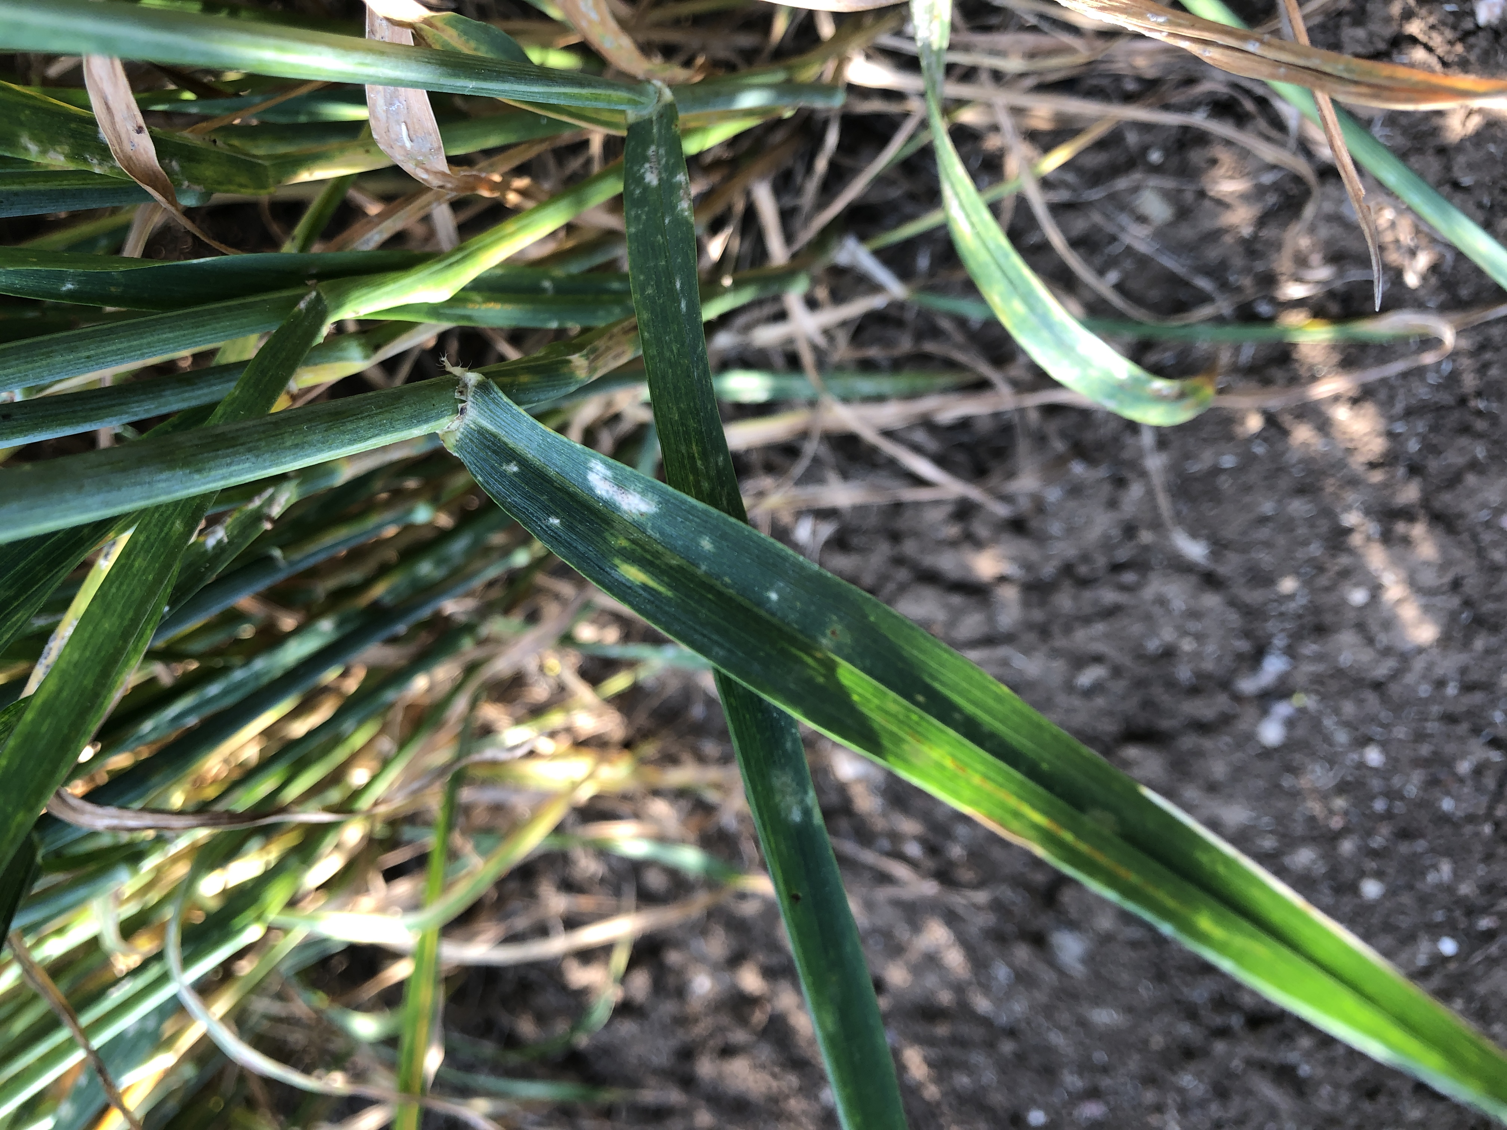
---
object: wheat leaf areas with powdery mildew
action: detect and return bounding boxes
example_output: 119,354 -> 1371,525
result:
530,451 -> 723,582
752,738 -> 835,850
17,524 -> 132,694
605,73 -> 730,304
